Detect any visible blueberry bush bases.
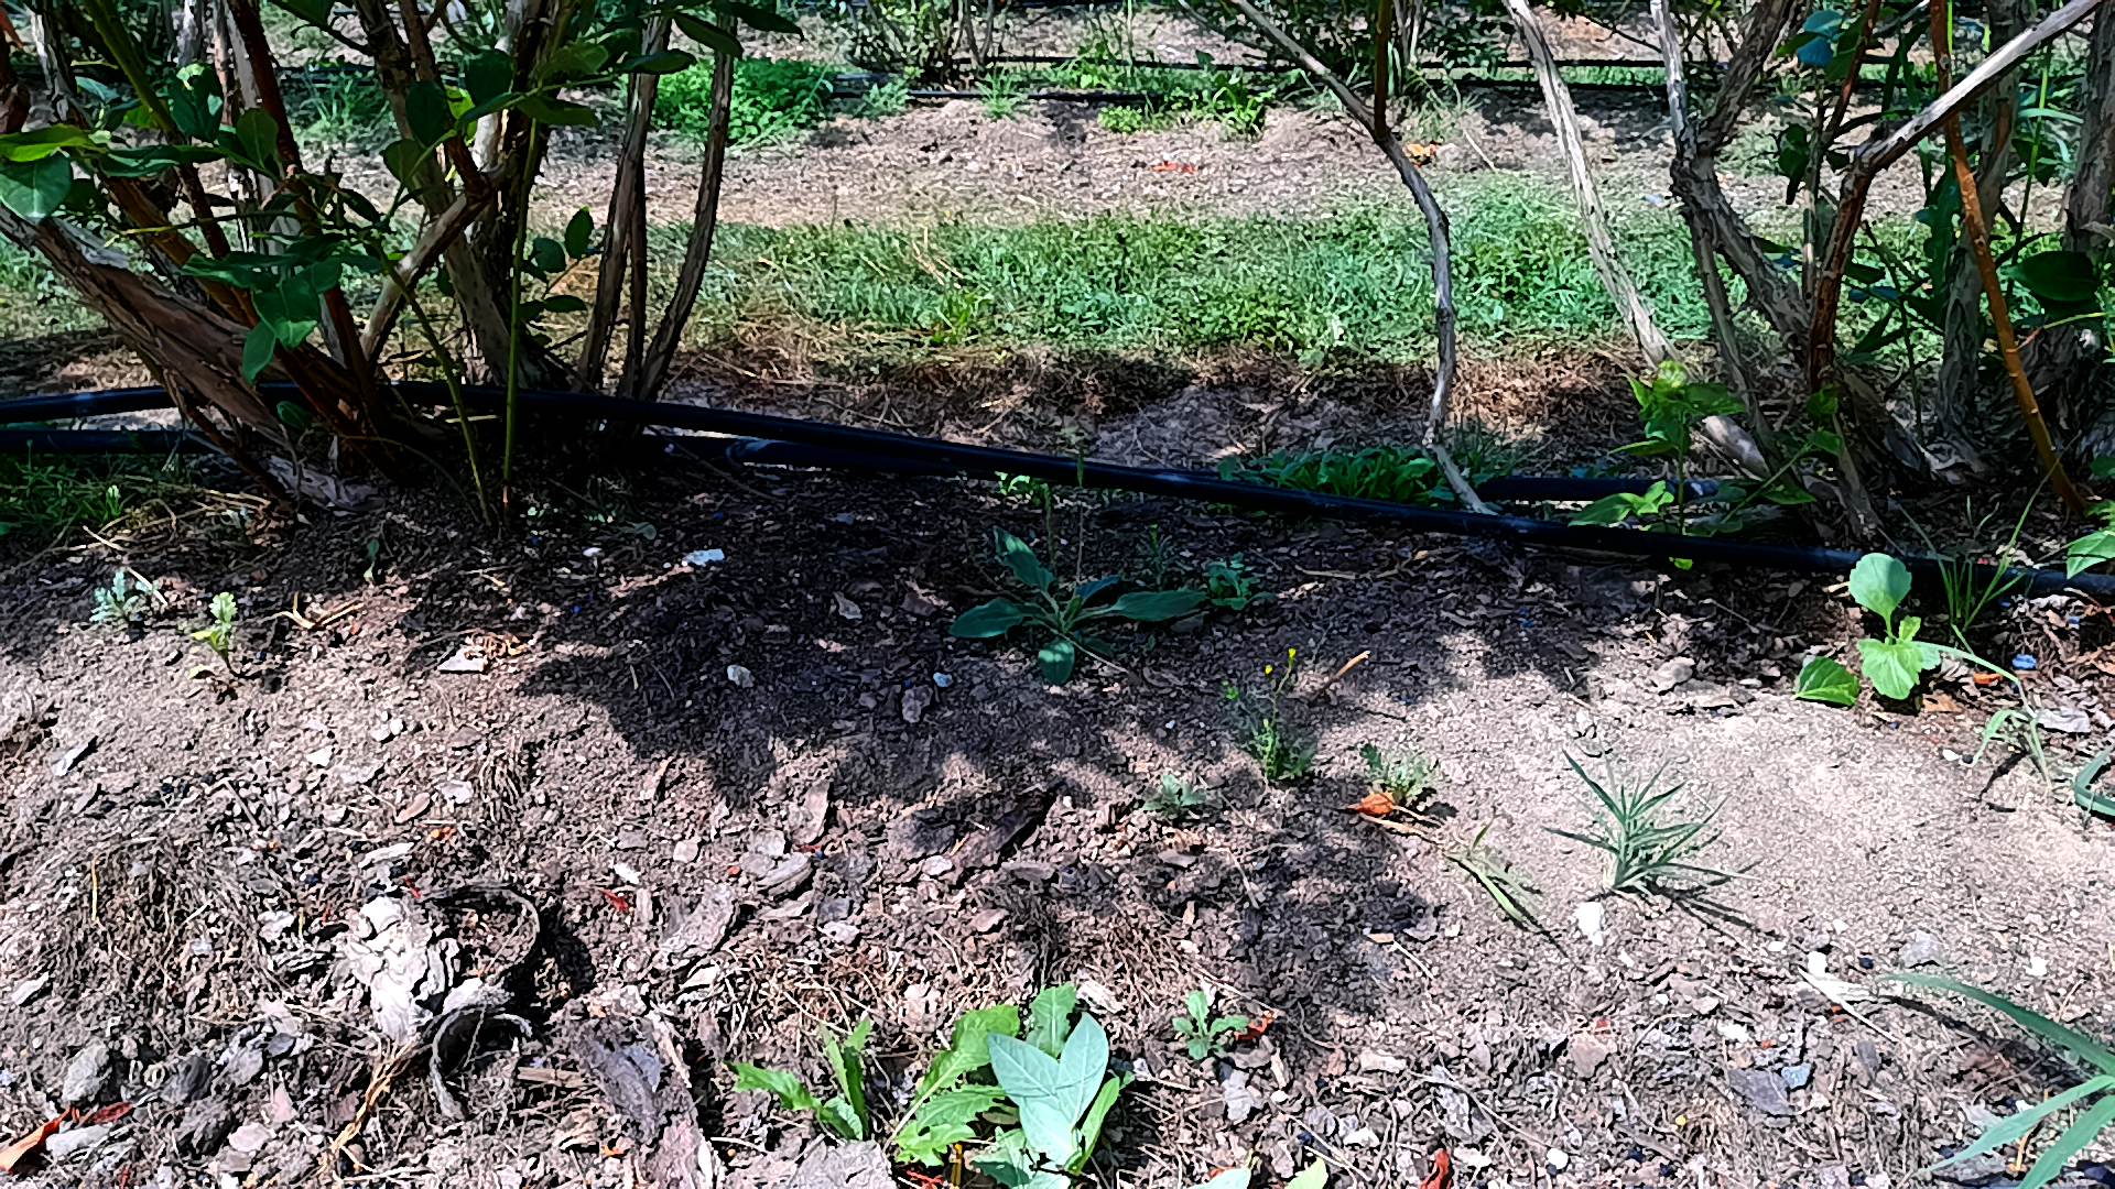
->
[1682,222,2115,712]
[39,107,719,606]
[856,12,1007,106]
